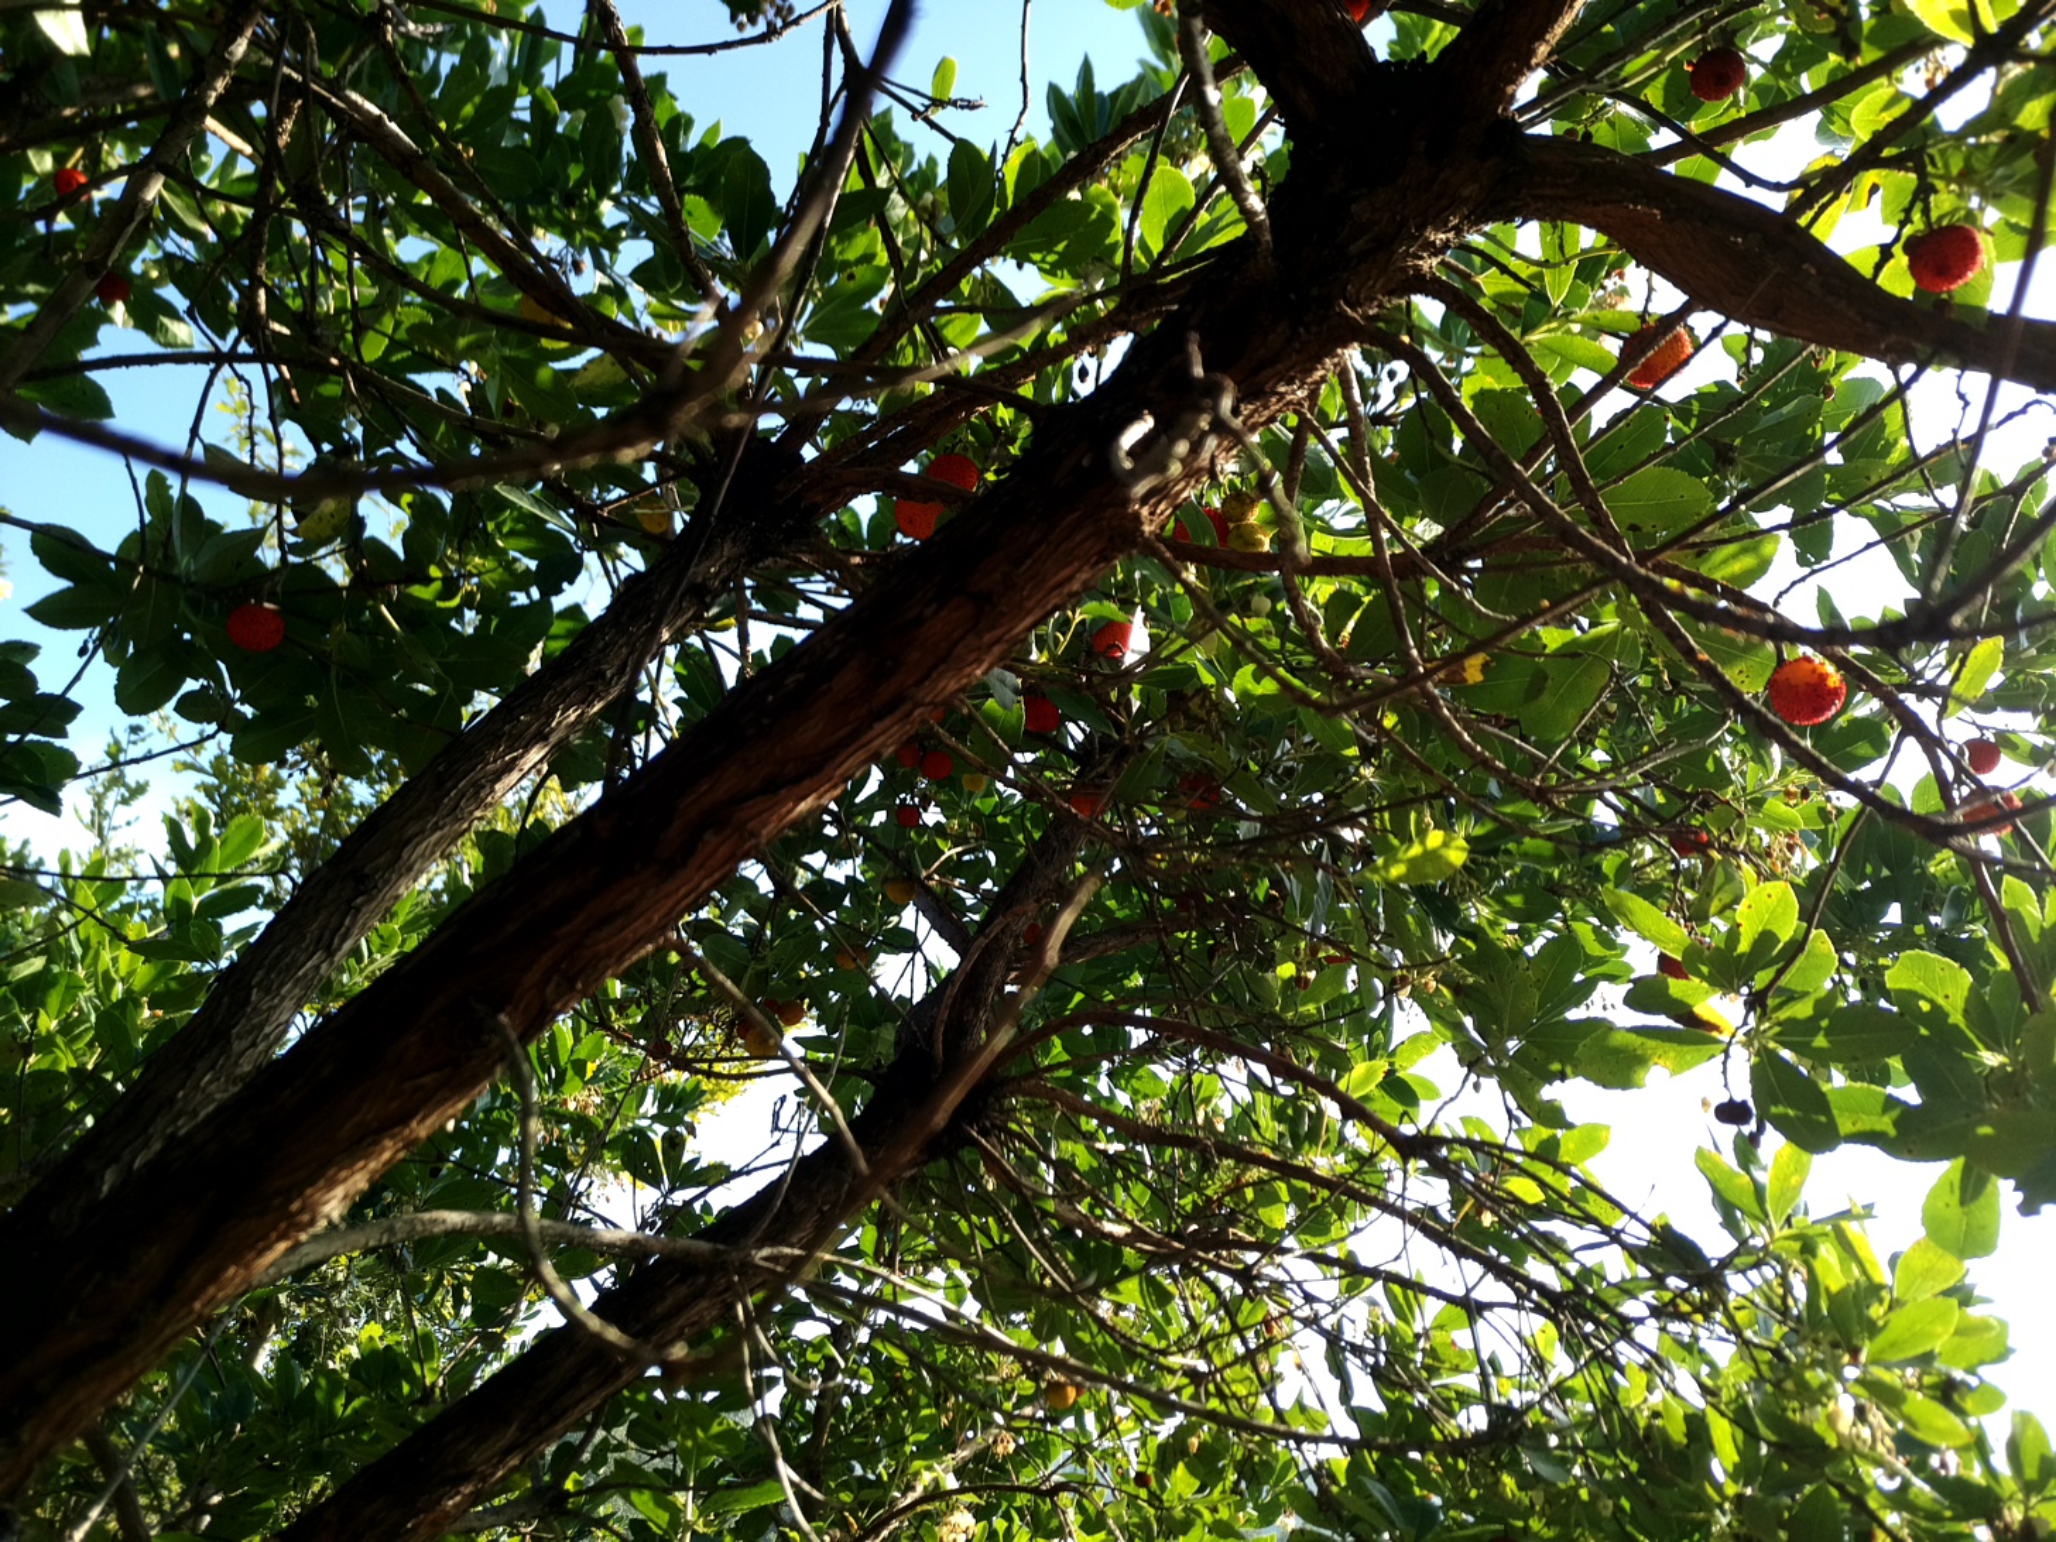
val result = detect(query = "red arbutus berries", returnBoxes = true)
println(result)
[1960,736,2002,775]
[1654,938,1711,983]
[1174,501,1232,555]
[1094,621,1137,659]
[229,602,285,651]
[899,745,921,769]
[1963,783,2023,838]
[1670,824,1709,857]
[1024,696,1059,733]
[1768,655,1848,728]
[922,752,954,781]
[96,270,131,303]
[895,804,920,828]
[894,491,949,539]
[1686,45,1749,101]
[55,168,90,203]
[926,448,978,494]
[1178,772,1222,811]
[1908,221,1986,294]
[1070,790,1105,819]
[1621,321,1693,394]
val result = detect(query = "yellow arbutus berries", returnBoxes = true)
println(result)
[1220,484,1258,523]
[639,503,669,536]
[835,943,871,970]
[778,1000,804,1025]
[1229,522,1269,556]
[1048,1380,1077,1411]
[884,873,916,902]
[745,1027,779,1056]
